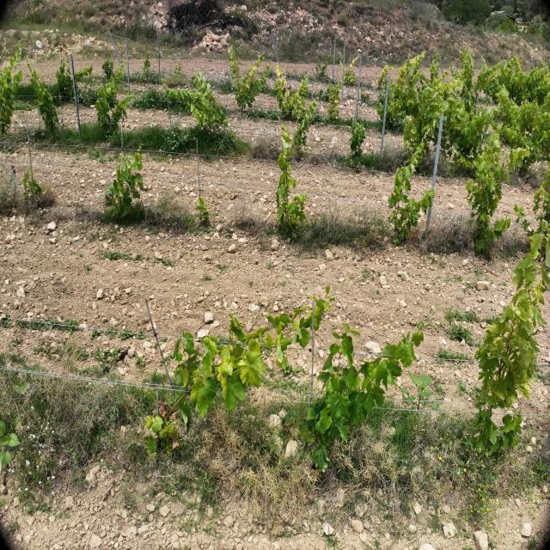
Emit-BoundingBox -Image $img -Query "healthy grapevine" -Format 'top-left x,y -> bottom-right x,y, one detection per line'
310,318 -> 431,469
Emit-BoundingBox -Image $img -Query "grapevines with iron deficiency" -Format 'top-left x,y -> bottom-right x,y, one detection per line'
136,290 -> 314,468
465,236 -> 550,472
